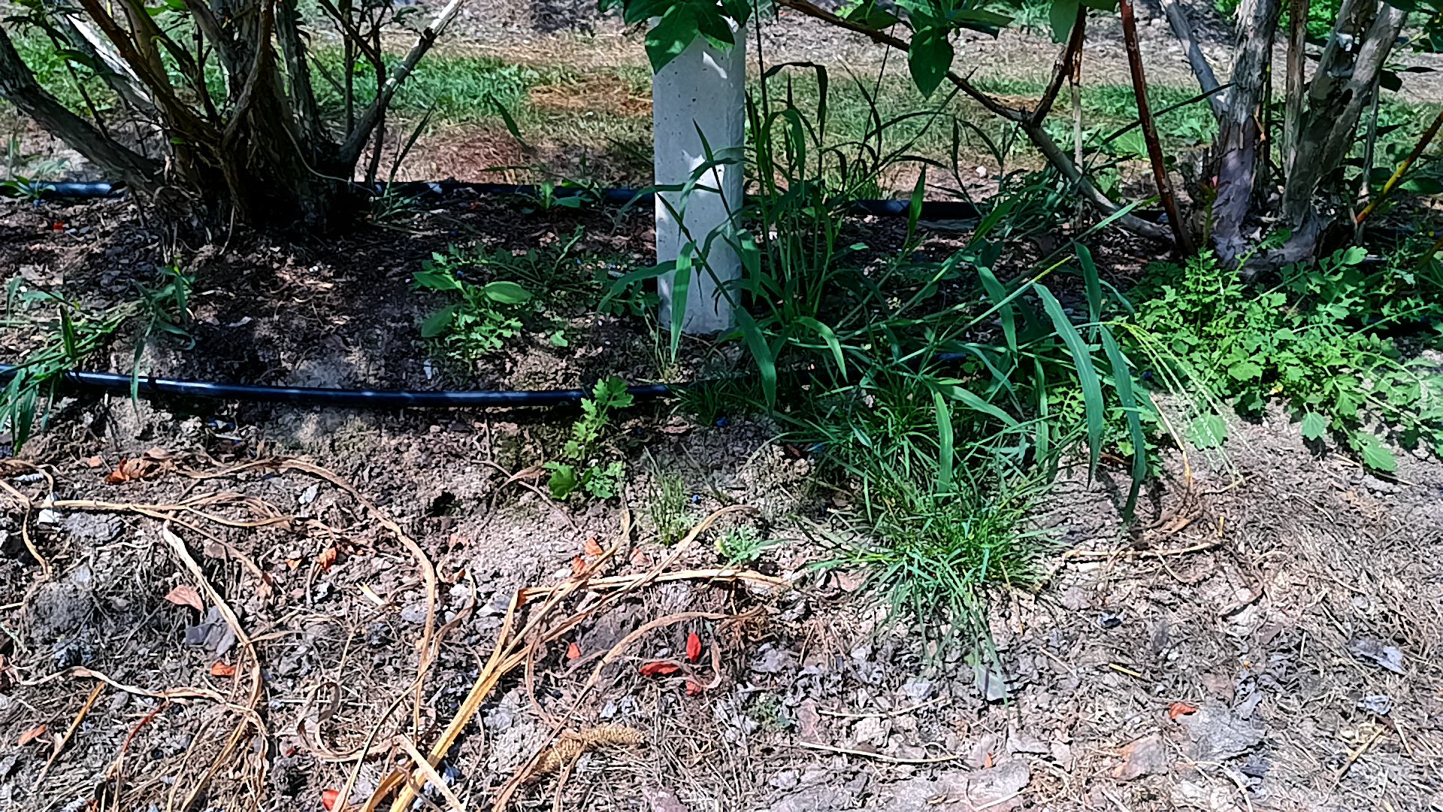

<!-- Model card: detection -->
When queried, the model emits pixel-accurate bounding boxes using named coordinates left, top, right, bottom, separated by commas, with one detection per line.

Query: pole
left=631, top=37, right=763, bottom=363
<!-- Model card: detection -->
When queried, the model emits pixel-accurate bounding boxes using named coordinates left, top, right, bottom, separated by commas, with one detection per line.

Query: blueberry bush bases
left=70, top=49, right=443, bottom=302
left=1115, top=68, right=1432, bottom=368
